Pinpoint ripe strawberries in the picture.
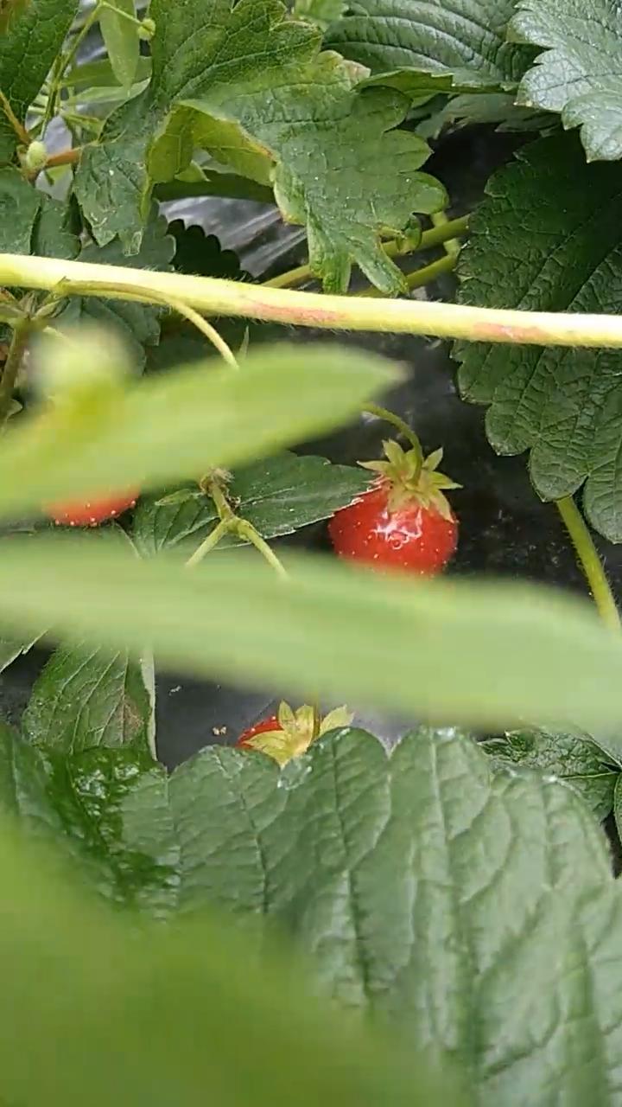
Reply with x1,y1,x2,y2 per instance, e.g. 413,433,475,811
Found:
333,467,457,585
231,696,370,821
20,408,144,538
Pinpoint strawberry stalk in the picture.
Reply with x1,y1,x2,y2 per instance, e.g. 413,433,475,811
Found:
390,412,434,506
